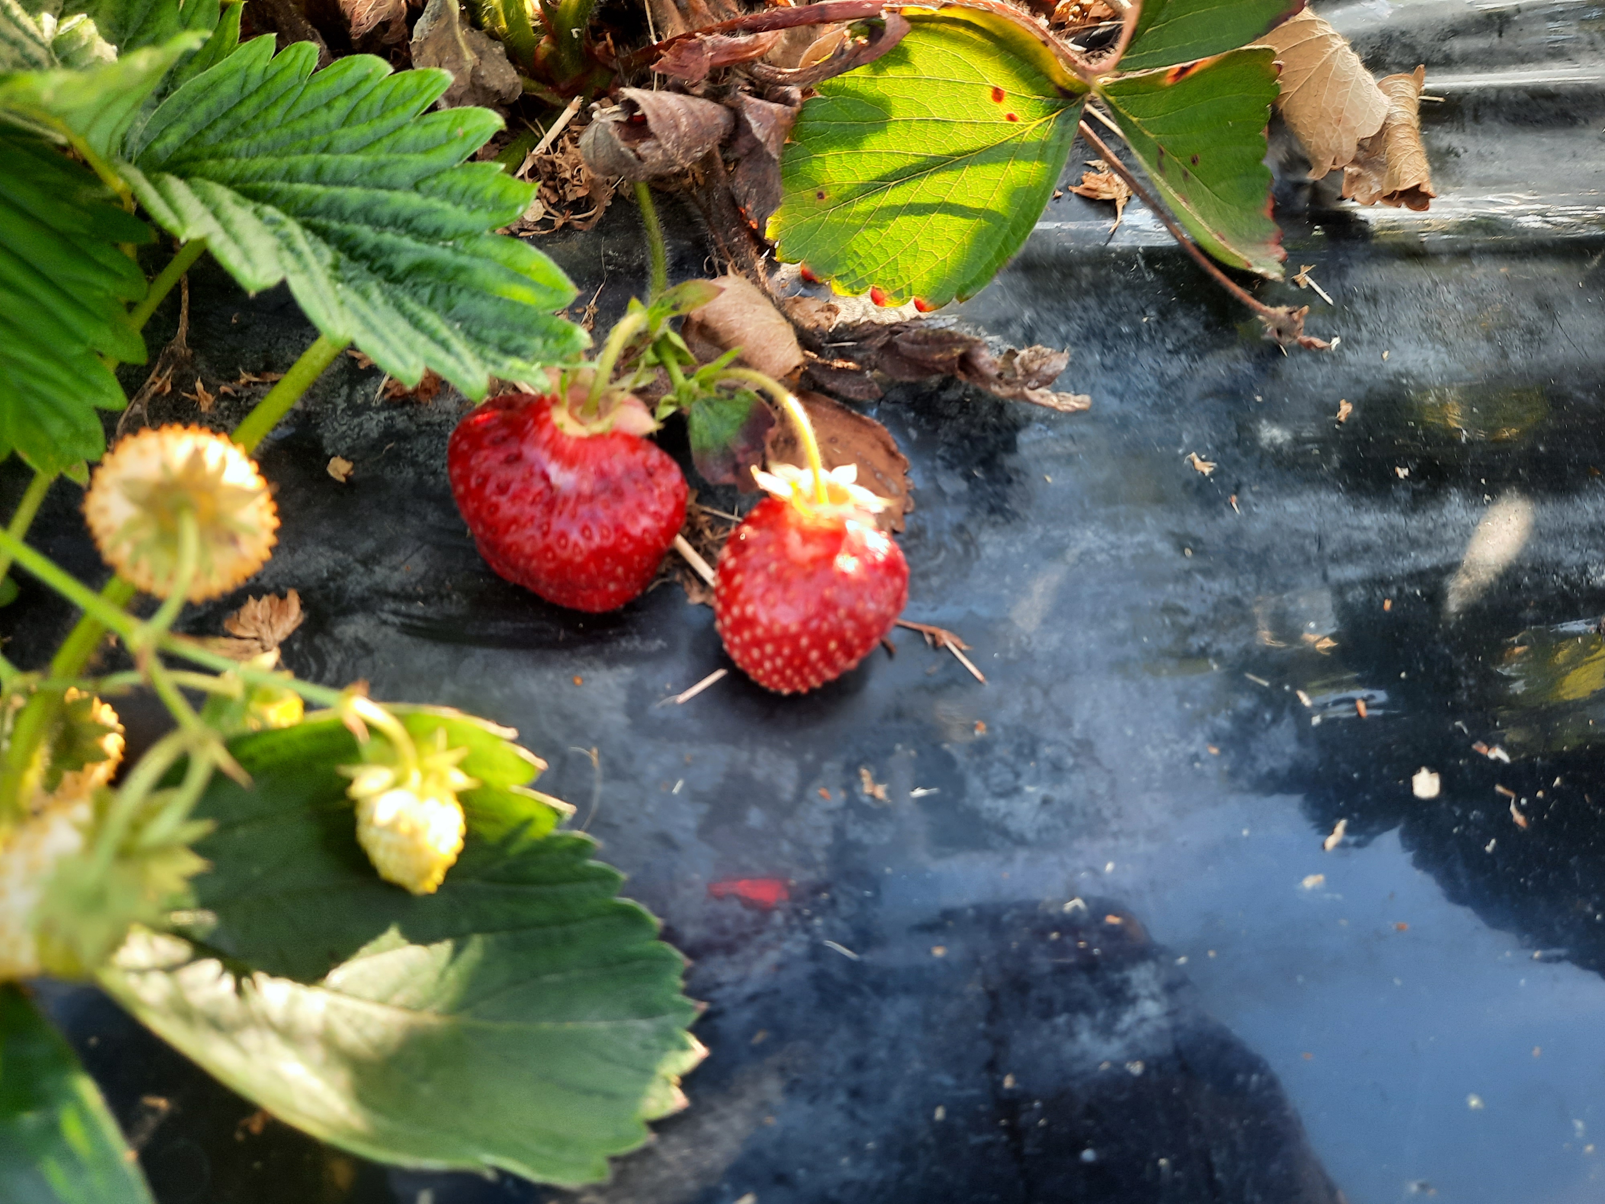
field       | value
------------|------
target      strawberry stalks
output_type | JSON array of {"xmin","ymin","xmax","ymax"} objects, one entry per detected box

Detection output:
[
  {"xmin": 730, "ymin": 346, "xmax": 834, "ymax": 547},
  {"xmin": 563, "ymin": 299, "xmax": 663, "ymax": 457}
]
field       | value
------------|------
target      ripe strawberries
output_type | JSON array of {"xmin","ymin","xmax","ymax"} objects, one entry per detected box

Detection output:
[
  {"xmin": 451, "ymin": 401, "xmax": 705, "ymax": 609},
  {"xmin": 717, "ymin": 493, "xmax": 891, "ymax": 688}
]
